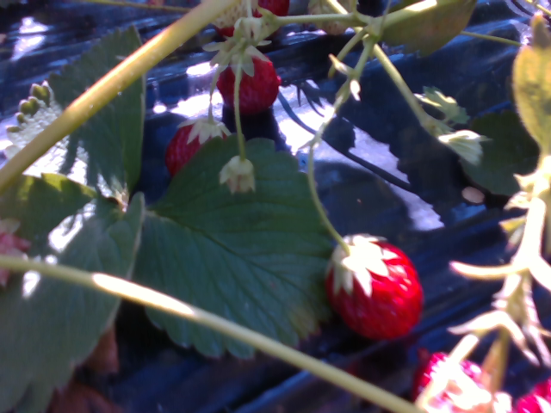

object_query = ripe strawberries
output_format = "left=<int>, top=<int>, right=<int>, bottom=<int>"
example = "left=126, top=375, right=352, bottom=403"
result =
left=193, top=0, right=289, bottom=41
left=164, top=117, right=231, bottom=175
left=415, top=344, right=487, bottom=413
left=213, top=47, right=286, bottom=117
left=331, top=235, right=431, bottom=340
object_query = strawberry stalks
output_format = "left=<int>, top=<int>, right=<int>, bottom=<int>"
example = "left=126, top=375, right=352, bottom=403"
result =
left=201, top=69, right=225, bottom=134
left=309, top=185, right=365, bottom=267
